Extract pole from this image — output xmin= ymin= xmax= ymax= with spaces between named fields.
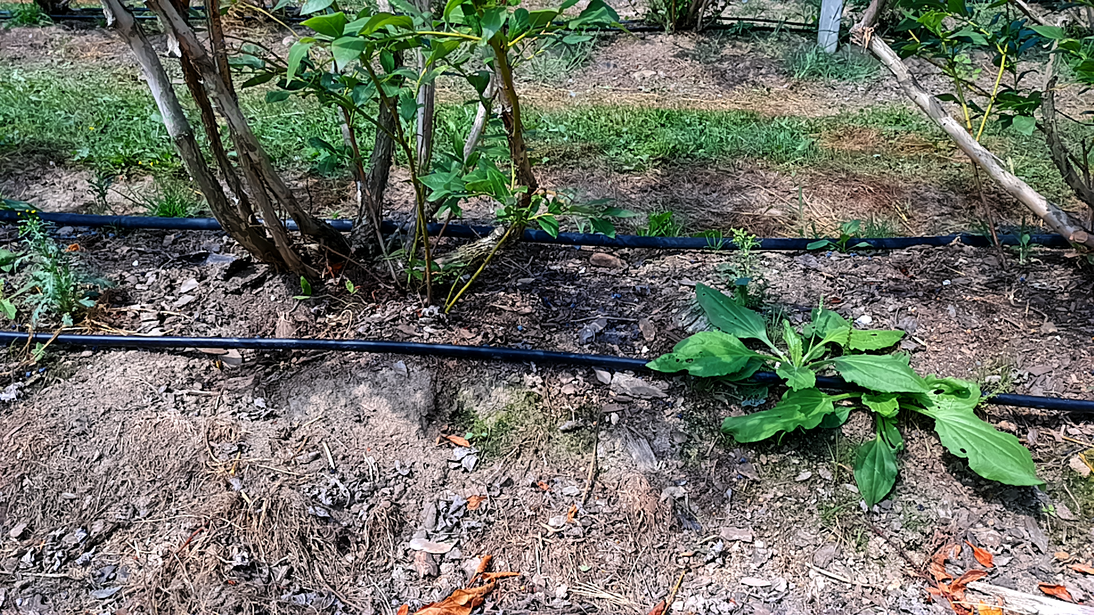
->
xmin=813 ymin=7 xmax=844 ymax=61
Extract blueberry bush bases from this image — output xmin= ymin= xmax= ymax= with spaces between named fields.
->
xmin=958 ymin=119 xmax=1094 ymax=290
xmin=165 ymin=108 xmax=484 ymax=342
xmin=648 ymin=0 xmax=730 ymax=40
